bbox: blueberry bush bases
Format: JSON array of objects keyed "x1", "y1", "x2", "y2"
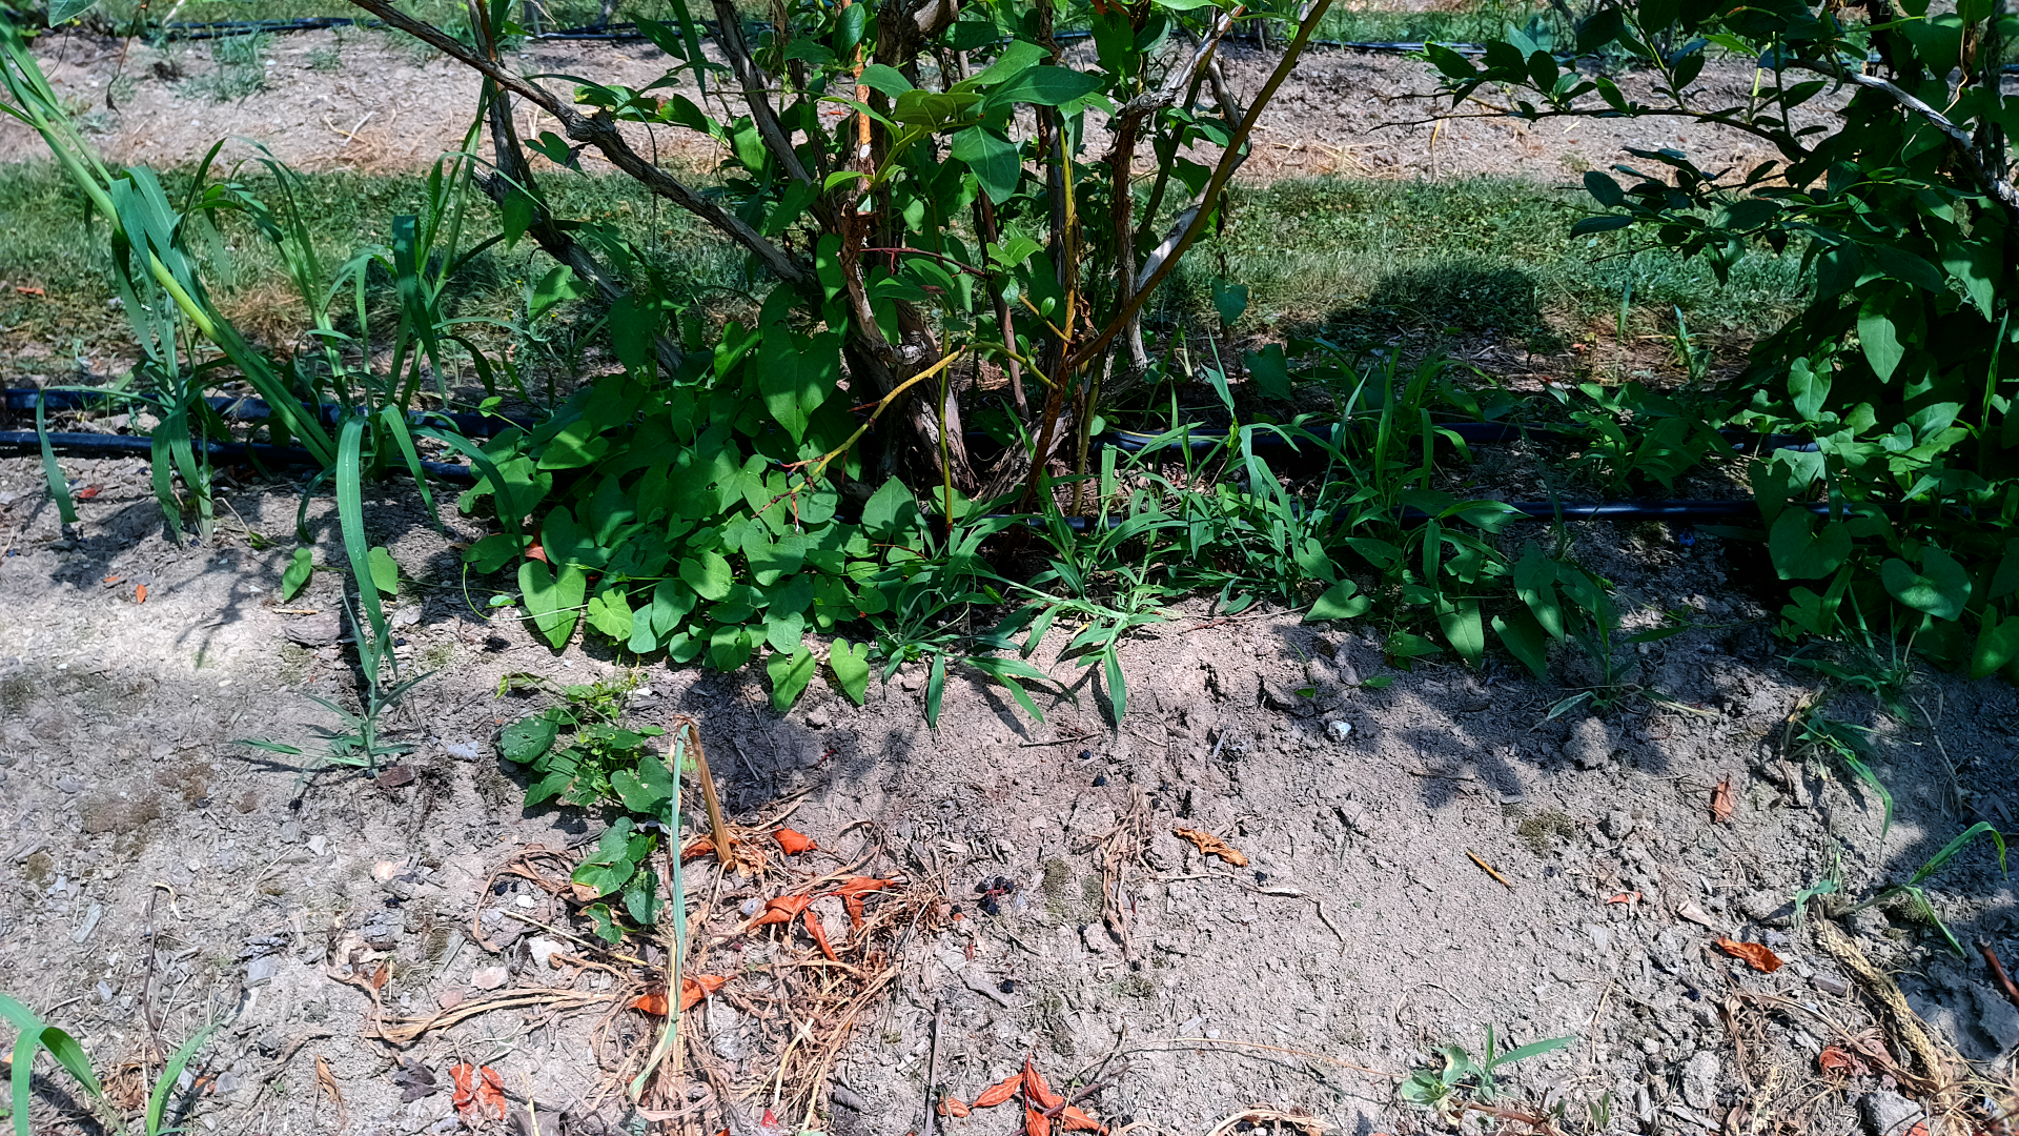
[
  {"x1": 651, "y1": 222, "x2": 1223, "y2": 661},
  {"x1": 1732, "y1": 165, "x2": 2019, "y2": 657}
]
